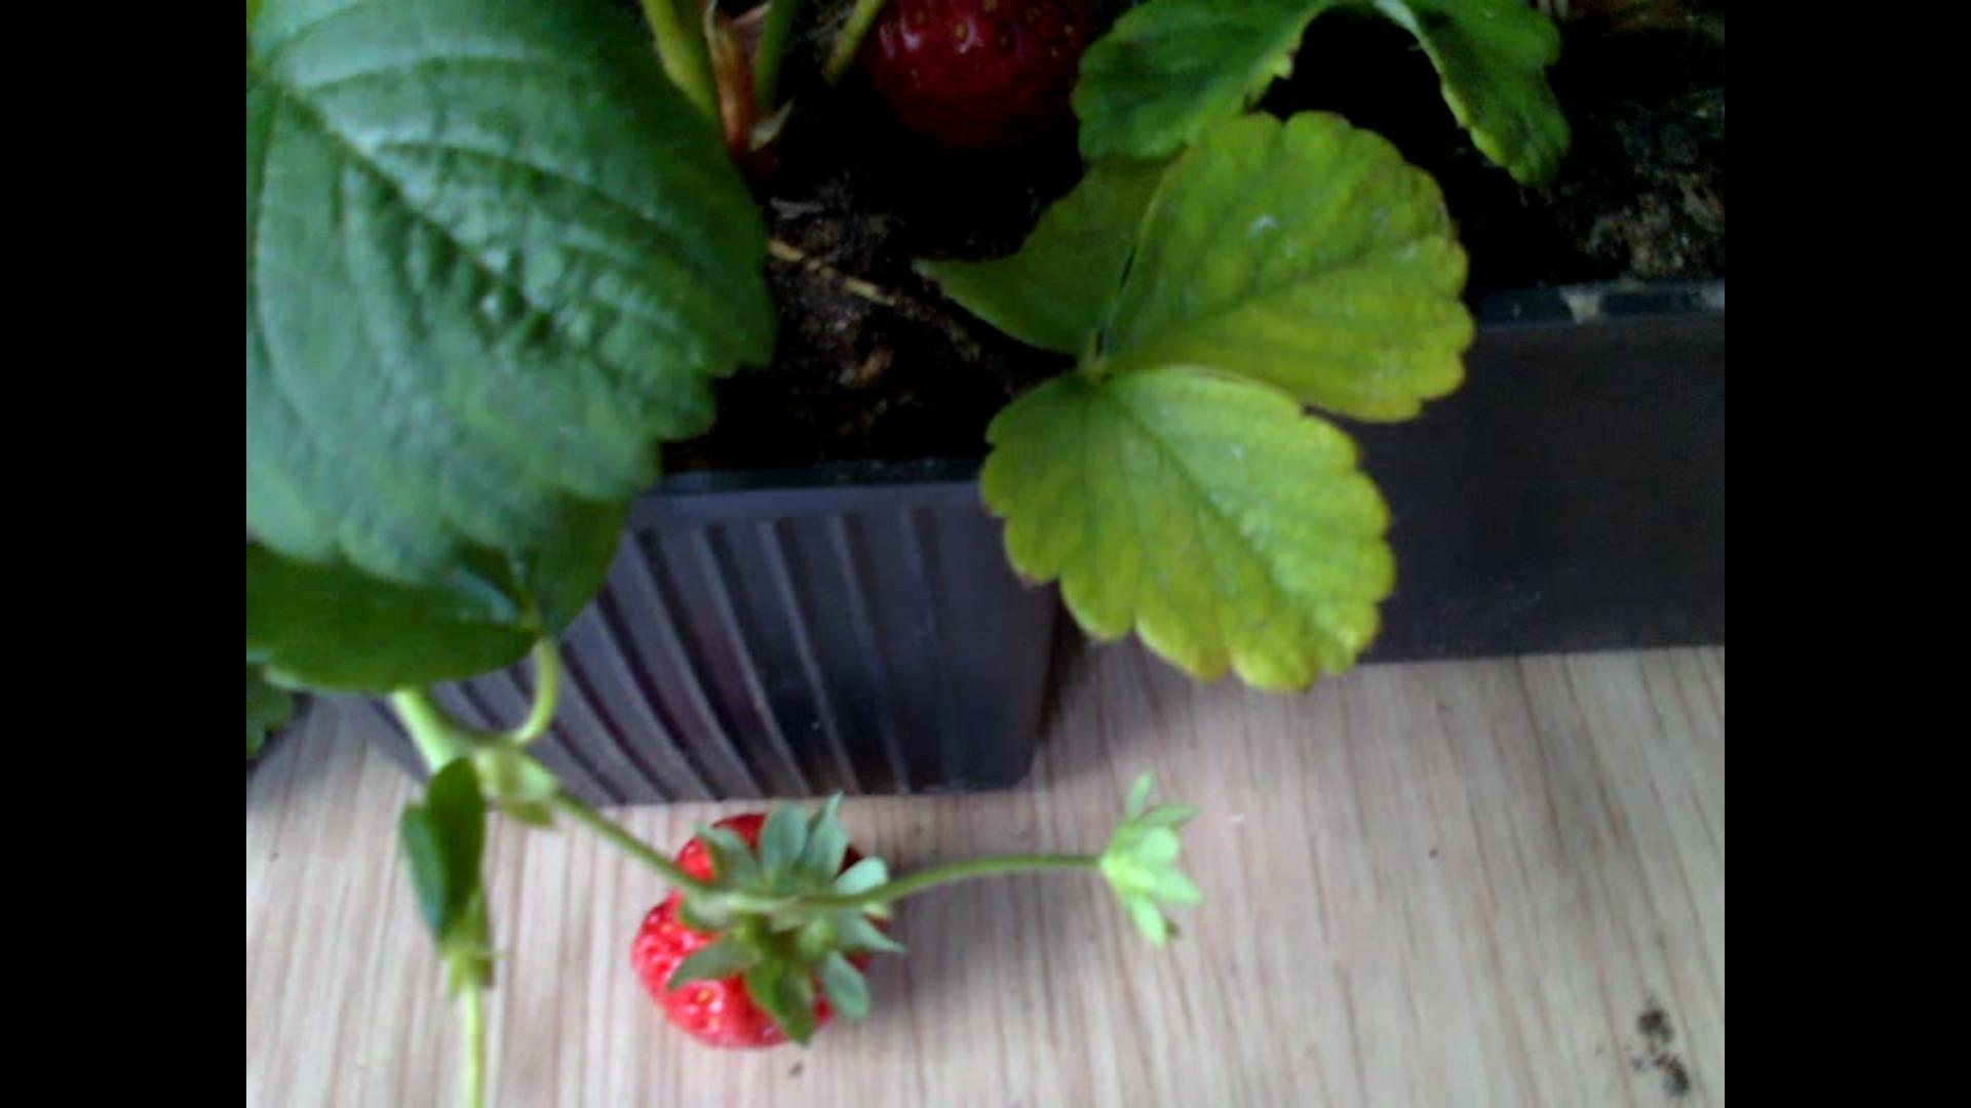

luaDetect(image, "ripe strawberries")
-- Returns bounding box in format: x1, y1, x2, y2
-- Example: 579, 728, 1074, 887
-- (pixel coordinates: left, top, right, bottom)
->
634, 816, 887, 1046
872, 1, 1056, 111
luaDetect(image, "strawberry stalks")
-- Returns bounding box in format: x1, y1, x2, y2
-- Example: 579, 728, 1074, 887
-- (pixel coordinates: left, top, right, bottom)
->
1026, 827, 1146, 898
538, 811, 765, 929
